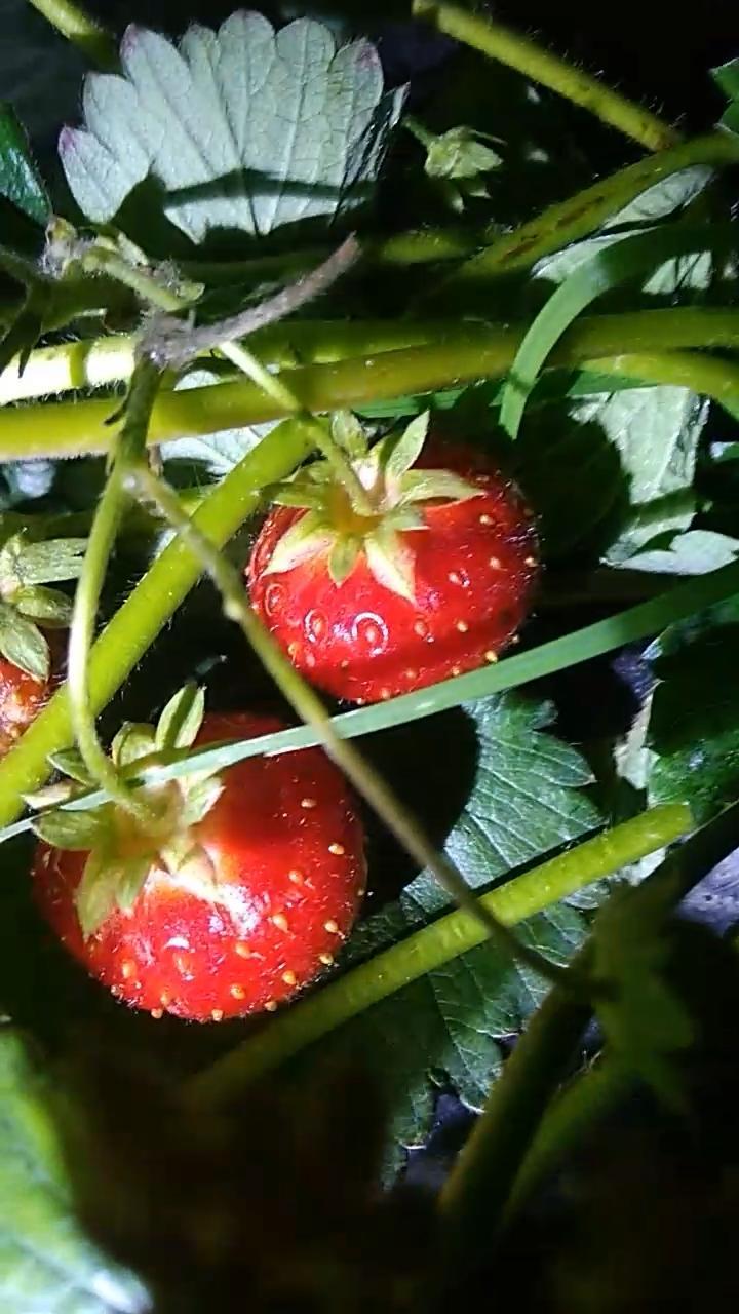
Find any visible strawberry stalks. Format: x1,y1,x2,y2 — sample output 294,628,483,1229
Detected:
224,377,412,566
57,576,201,865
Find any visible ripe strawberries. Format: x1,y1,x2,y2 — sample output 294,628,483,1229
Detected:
47,720,379,1032
0,600,66,807
219,447,556,692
